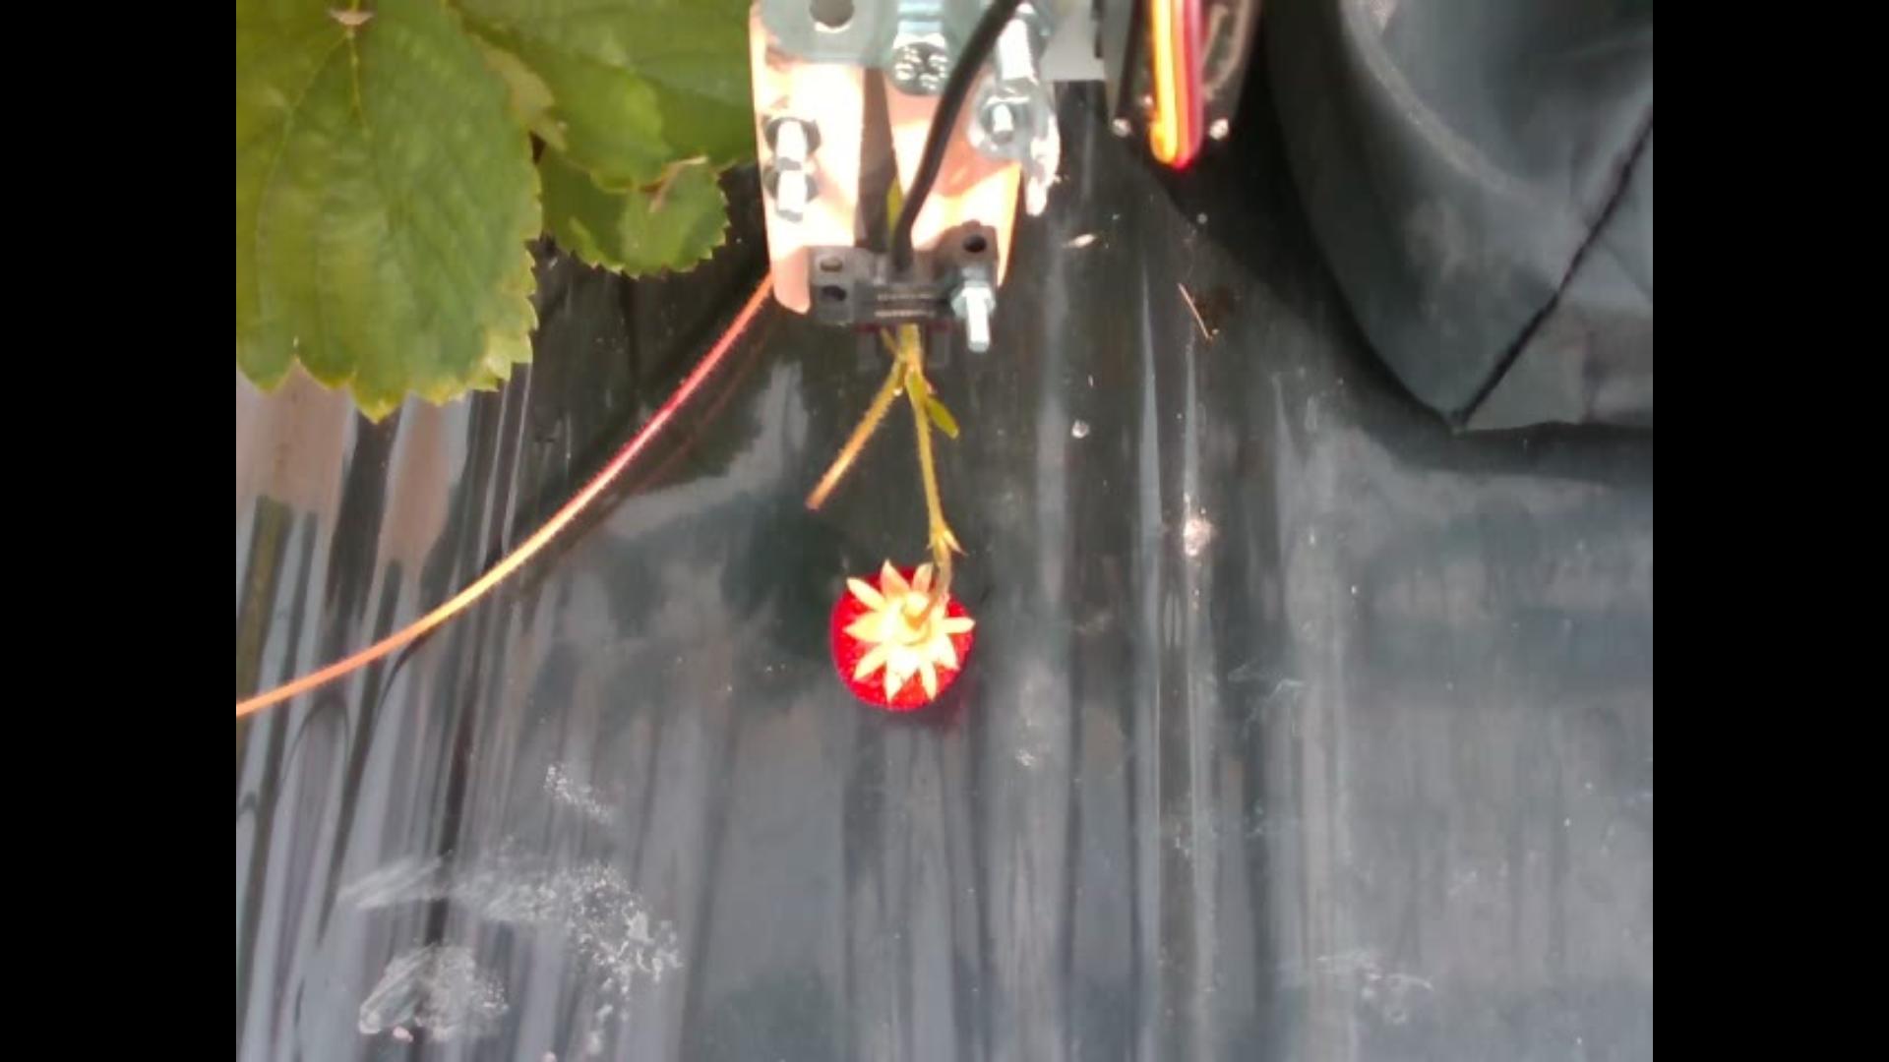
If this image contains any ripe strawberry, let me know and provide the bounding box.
[819,542,991,714]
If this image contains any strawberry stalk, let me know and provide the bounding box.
[893,392,953,652]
